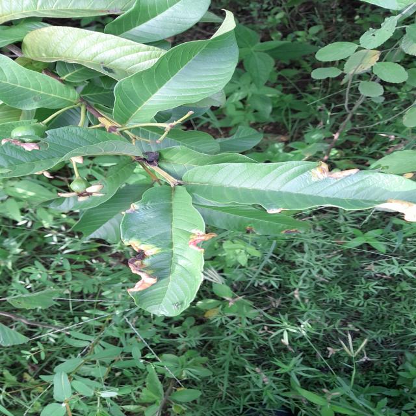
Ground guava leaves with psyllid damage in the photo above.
[174,159,416,215]
[112,177,214,320]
